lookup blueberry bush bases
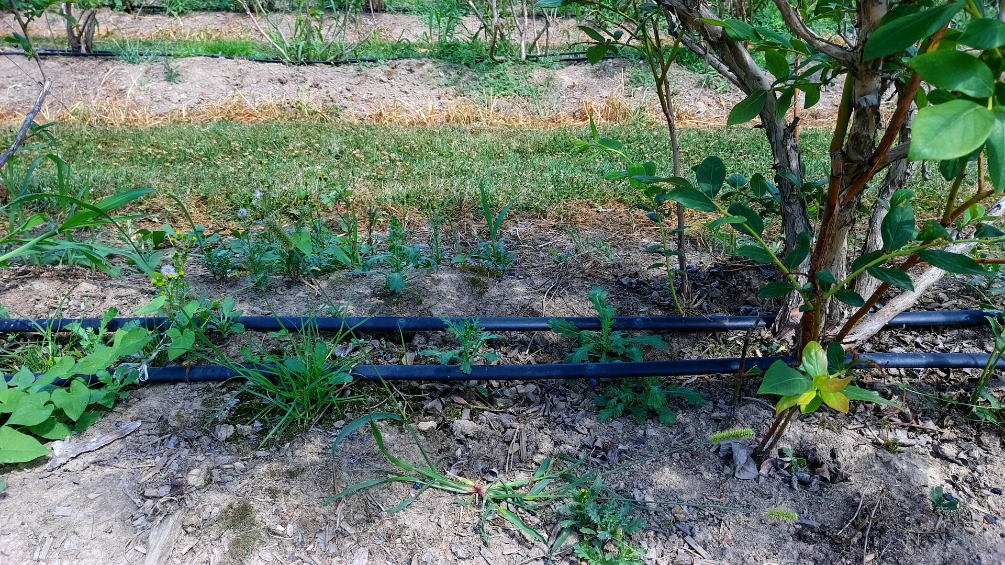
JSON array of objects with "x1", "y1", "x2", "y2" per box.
[
  {"x1": 712, "y1": 193, "x2": 971, "y2": 403},
  {"x1": 260, "y1": 34, "x2": 357, "y2": 83},
  {"x1": 352, "y1": 0, "x2": 396, "y2": 20},
  {"x1": 478, "y1": 28, "x2": 560, "y2": 76},
  {"x1": 111, "y1": 0, "x2": 148, "y2": 19},
  {"x1": 49, "y1": 23, "x2": 114, "y2": 71}
]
